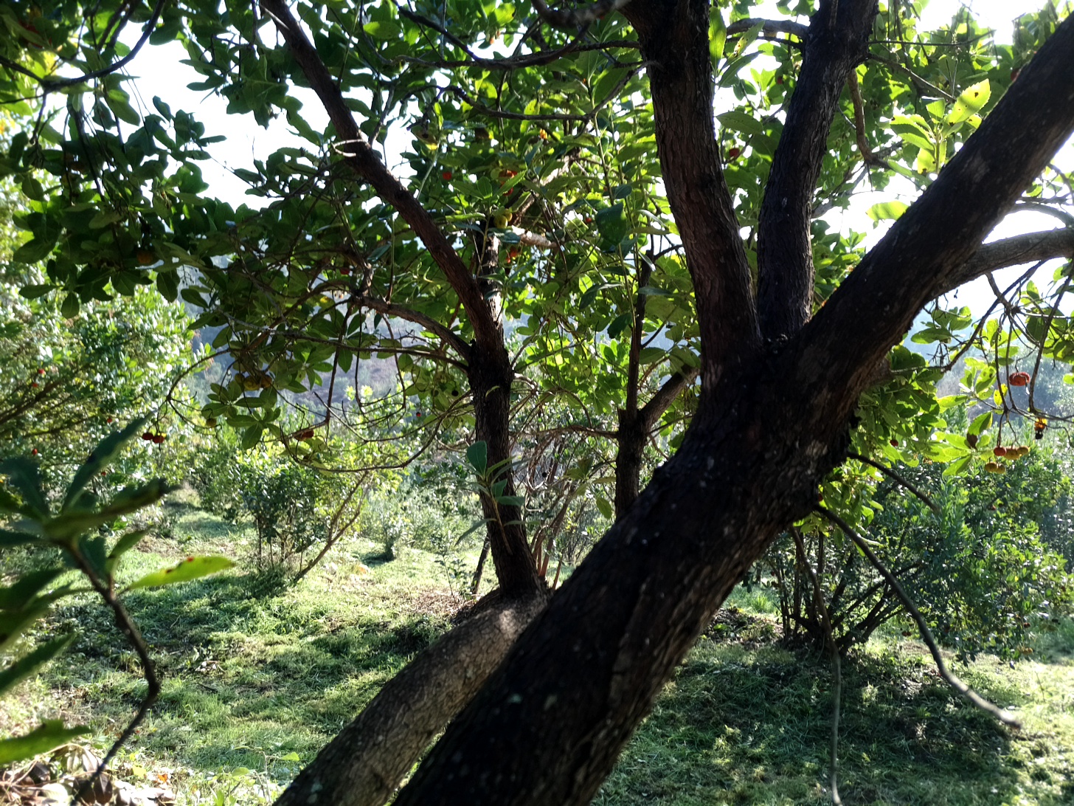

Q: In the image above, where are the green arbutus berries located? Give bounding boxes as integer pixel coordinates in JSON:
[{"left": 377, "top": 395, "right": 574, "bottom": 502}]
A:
[
  {"left": 206, "top": 418, "right": 217, "bottom": 427},
  {"left": 245, "top": 375, "right": 261, "bottom": 391},
  {"left": 260, "top": 374, "right": 272, "bottom": 388}
]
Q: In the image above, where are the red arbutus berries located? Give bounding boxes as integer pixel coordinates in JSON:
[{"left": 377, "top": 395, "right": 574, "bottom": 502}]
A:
[
  {"left": 340, "top": 265, "right": 350, "bottom": 274},
  {"left": 32, "top": 383, "right": 38, "bottom": 387},
  {"left": 303, "top": 428, "right": 314, "bottom": 438},
  {"left": 32, "top": 448, "right": 38, "bottom": 454},
  {"left": 729, "top": 147, "right": 740, "bottom": 157},
  {"left": 1013, "top": 372, "right": 1030, "bottom": 386},
  {"left": 142, "top": 432, "right": 154, "bottom": 440},
  {"left": 153, "top": 435, "right": 165, "bottom": 443},
  {"left": 889, "top": 439, "right": 899, "bottom": 446},
  {"left": 416, "top": 412, "right": 421, "bottom": 417},
  {"left": 993, "top": 446, "right": 1006, "bottom": 456},
  {"left": 107, "top": 418, "right": 112, "bottom": 423},
  {"left": 443, "top": 171, "right": 452, "bottom": 180},
  {"left": 585, "top": 216, "right": 593, "bottom": 224},
  {"left": 38, "top": 368, "right": 44, "bottom": 375}
]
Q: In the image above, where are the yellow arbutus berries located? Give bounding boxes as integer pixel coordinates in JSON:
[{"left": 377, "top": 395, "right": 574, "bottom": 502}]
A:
[
  {"left": 494, "top": 215, "right": 509, "bottom": 229},
  {"left": 137, "top": 250, "right": 152, "bottom": 263},
  {"left": 994, "top": 463, "right": 1006, "bottom": 474},
  {"left": 985, "top": 461, "right": 997, "bottom": 473},
  {"left": 1004, "top": 447, "right": 1019, "bottom": 460},
  {"left": 1017, "top": 445, "right": 1028, "bottom": 454},
  {"left": 503, "top": 211, "right": 513, "bottom": 221}
]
